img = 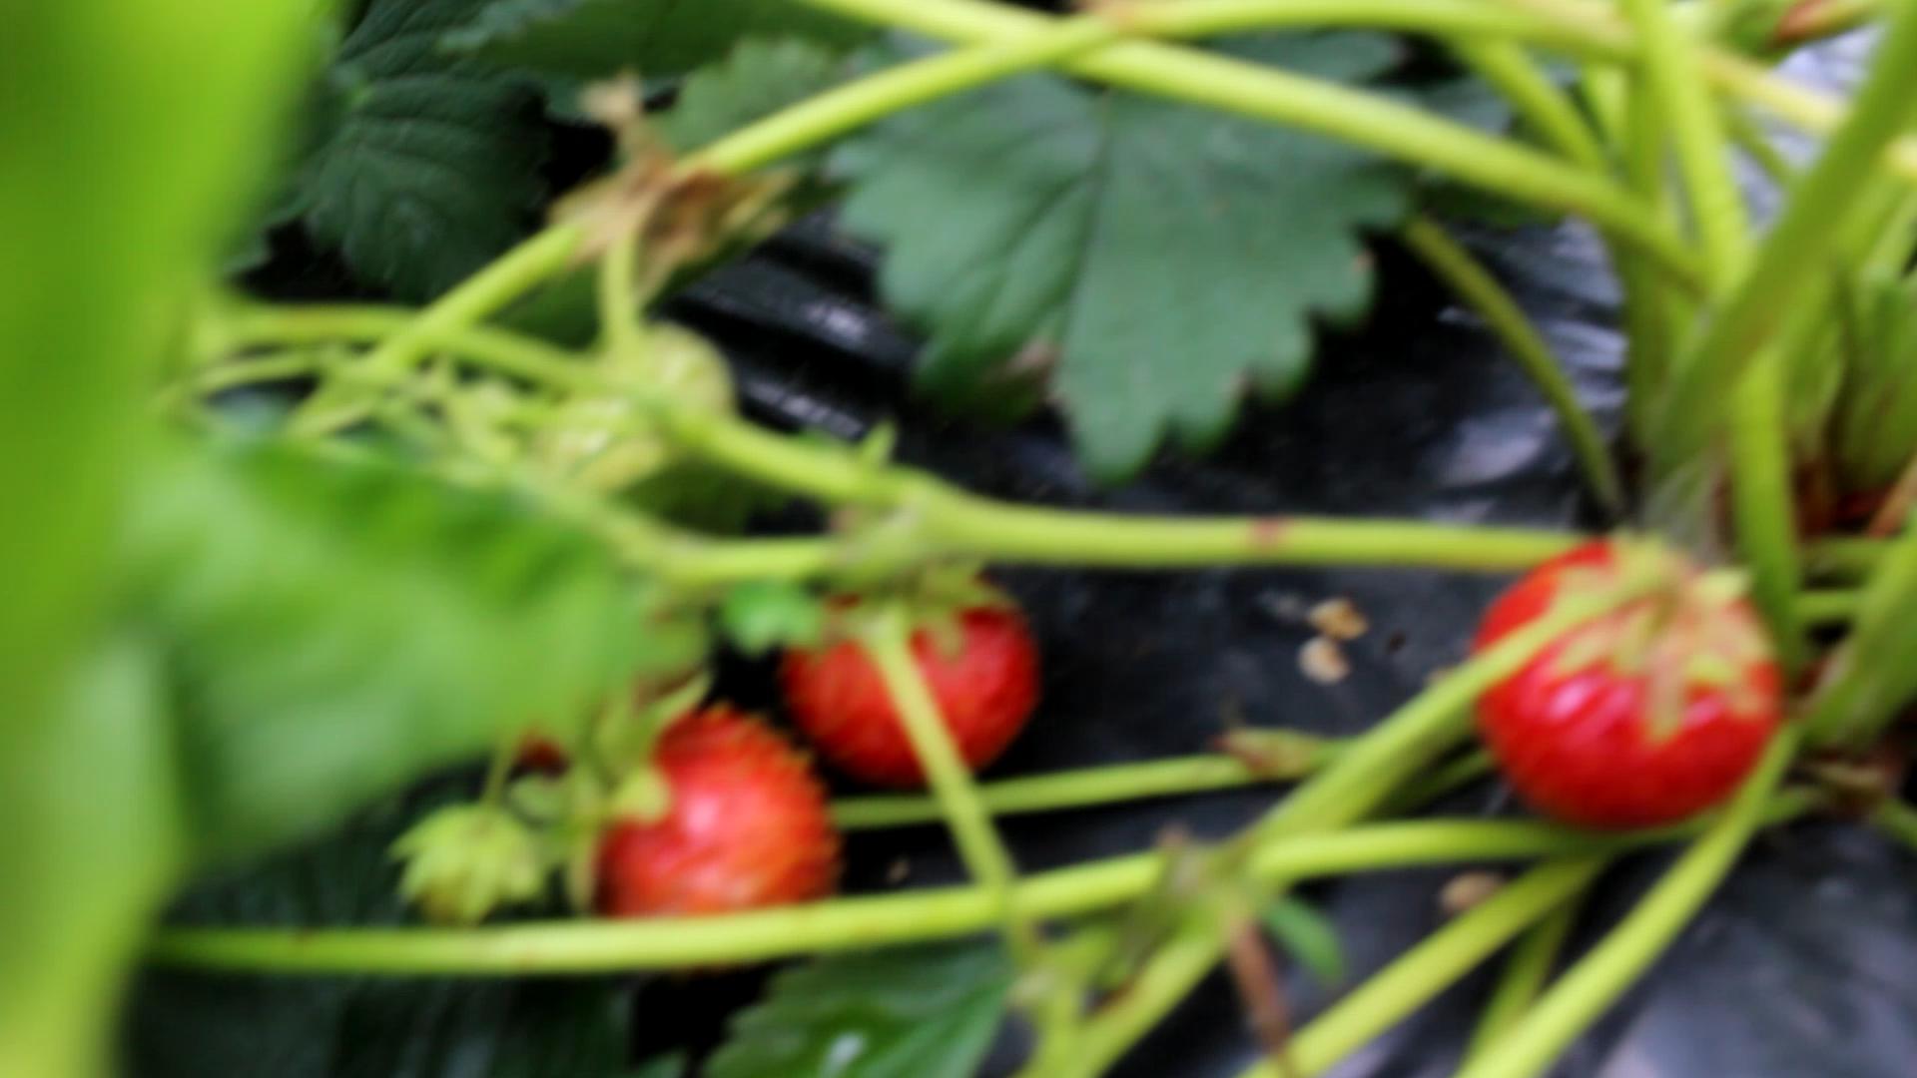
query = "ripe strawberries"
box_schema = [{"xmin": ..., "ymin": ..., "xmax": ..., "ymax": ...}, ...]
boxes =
[
  {"xmin": 1437, "ymin": 510, "xmax": 1805, "ymax": 842},
  {"xmin": 757, "ymin": 490, "xmax": 1111, "ymax": 776},
  {"xmin": 566, "ymin": 692, "xmax": 846, "ymax": 935}
]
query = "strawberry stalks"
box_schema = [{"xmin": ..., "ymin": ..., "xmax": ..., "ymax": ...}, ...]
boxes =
[
  {"xmin": 1315, "ymin": 549, "xmax": 1668, "ymax": 818},
  {"xmin": 838, "ymin": 610, "xmax": 1109, "ymax": 1052},
  {"xmin": 566, "ymin": 662, "xmax": 665, "ymax": 835}
]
